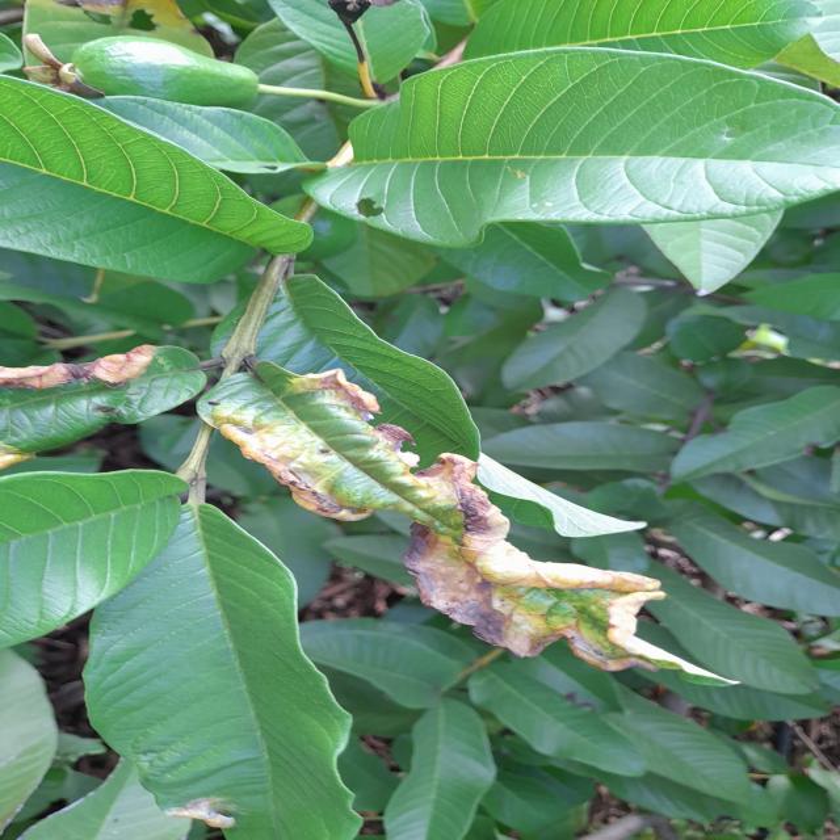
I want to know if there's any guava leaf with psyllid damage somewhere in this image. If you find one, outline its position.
[202,356,743,690]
